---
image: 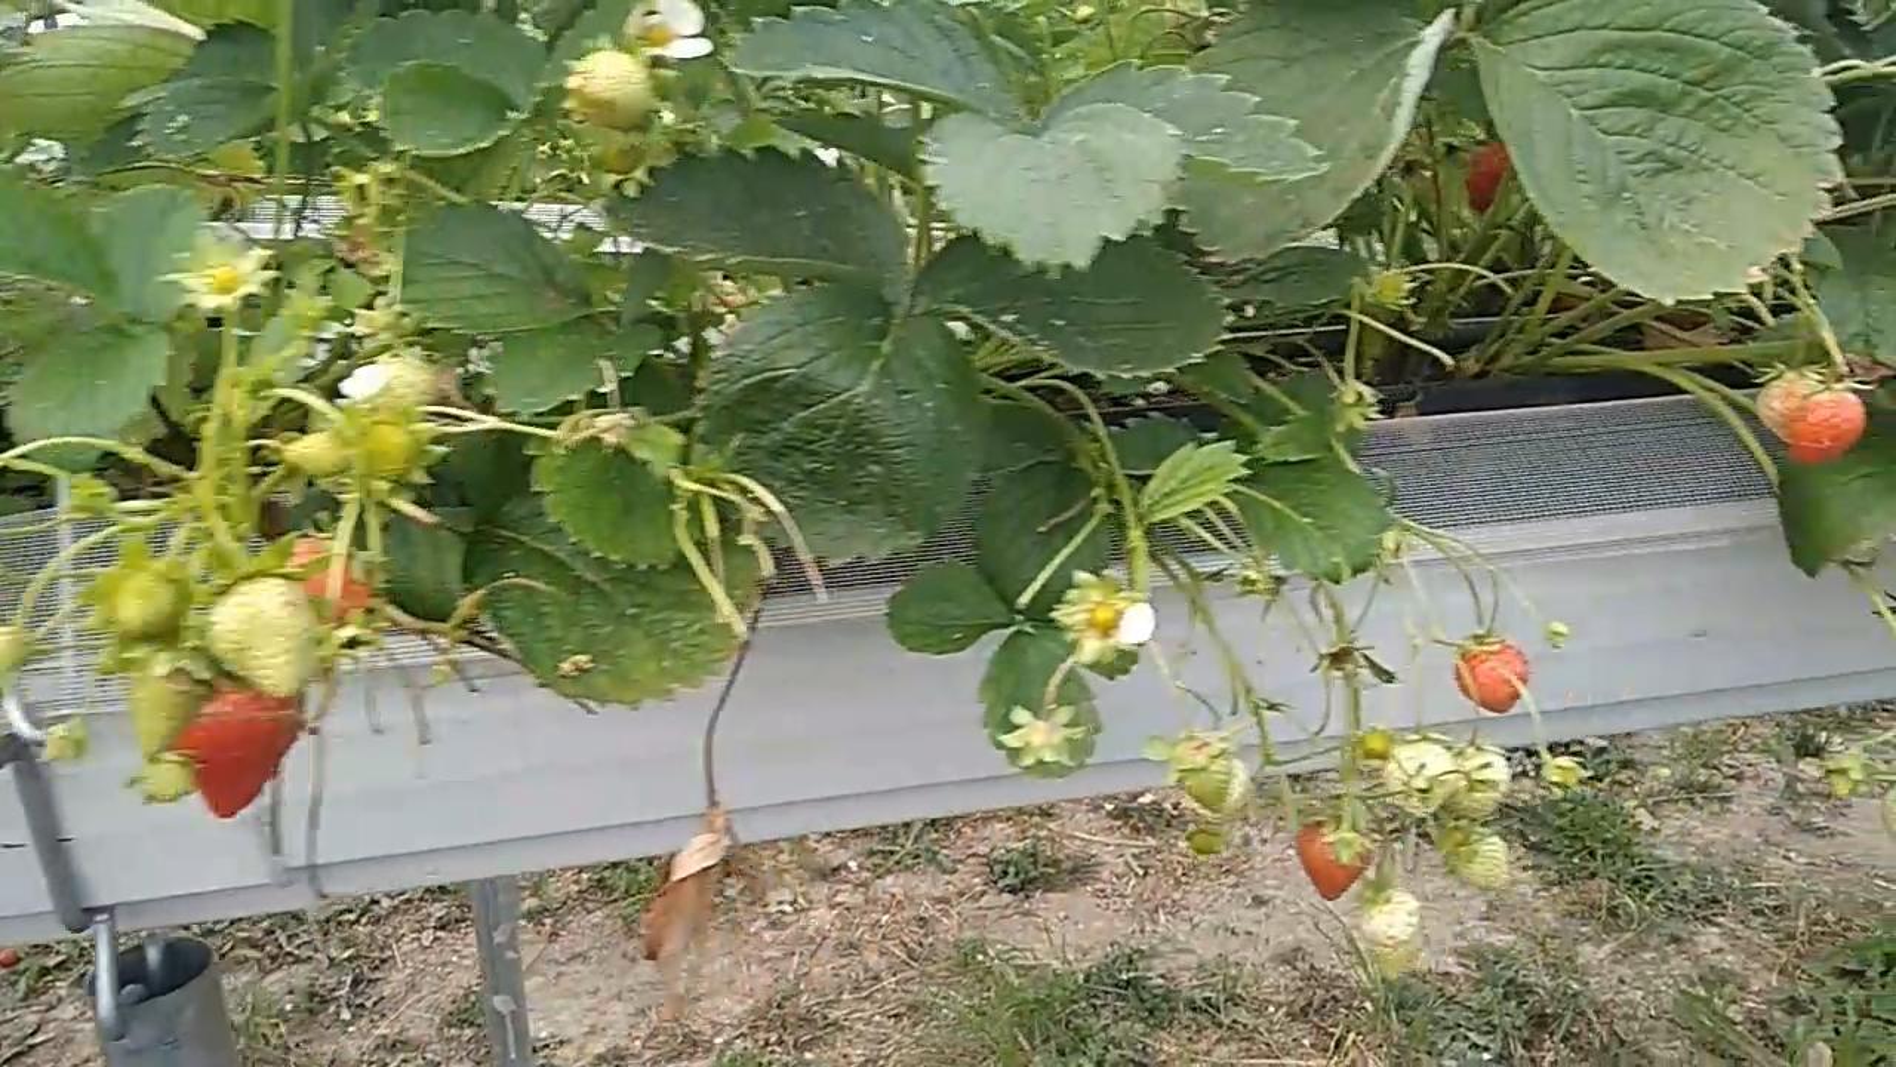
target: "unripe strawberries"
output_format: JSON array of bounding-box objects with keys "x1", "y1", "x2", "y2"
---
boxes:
[
  {"x1": 563, "y1": 44, "x2": 661, "y2": 122},
  {"x1": 1355, "y1": 890, "x2": 1429, "y2": 952},
  {"x1": 1384, "y1": 740, "x2": 1445, "y2": 807},
  {"x1": 1440, "y1": 835, "x2": 1523, "y2": 894},
  {"x1": 277, "y1": 439, "x2": 355, "y2": 482},
  {"x1": 1177, "y1": 750, "x2": 1255, "y2": 828},
  {"x1": 195, "y1": 575, "x2": 328, "y2": 698},
  {"x1": 1449, "y1": 742, "x2": 1515, "y2": 815}
]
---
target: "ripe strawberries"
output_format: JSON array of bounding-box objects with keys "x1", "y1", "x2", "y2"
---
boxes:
[
  {"x1": 1295, "y1": 817, "x2": 1370, "y2": 897},
  {"x1": 1452, "y1": 636, "x2": 1530, "y2": 714},
  {"x1": 265, "y1": 531, "x2": 375, "y2": 635},
  {"x1": 1761, "y1": 372, "x2": 1857, "y2": 461},
  {"x1": 169, "y1": 668, "x2": 298, "y2": 825},
  {"x1": 1441, "y1": 122, "x2": 1527, "y2": 224}
]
